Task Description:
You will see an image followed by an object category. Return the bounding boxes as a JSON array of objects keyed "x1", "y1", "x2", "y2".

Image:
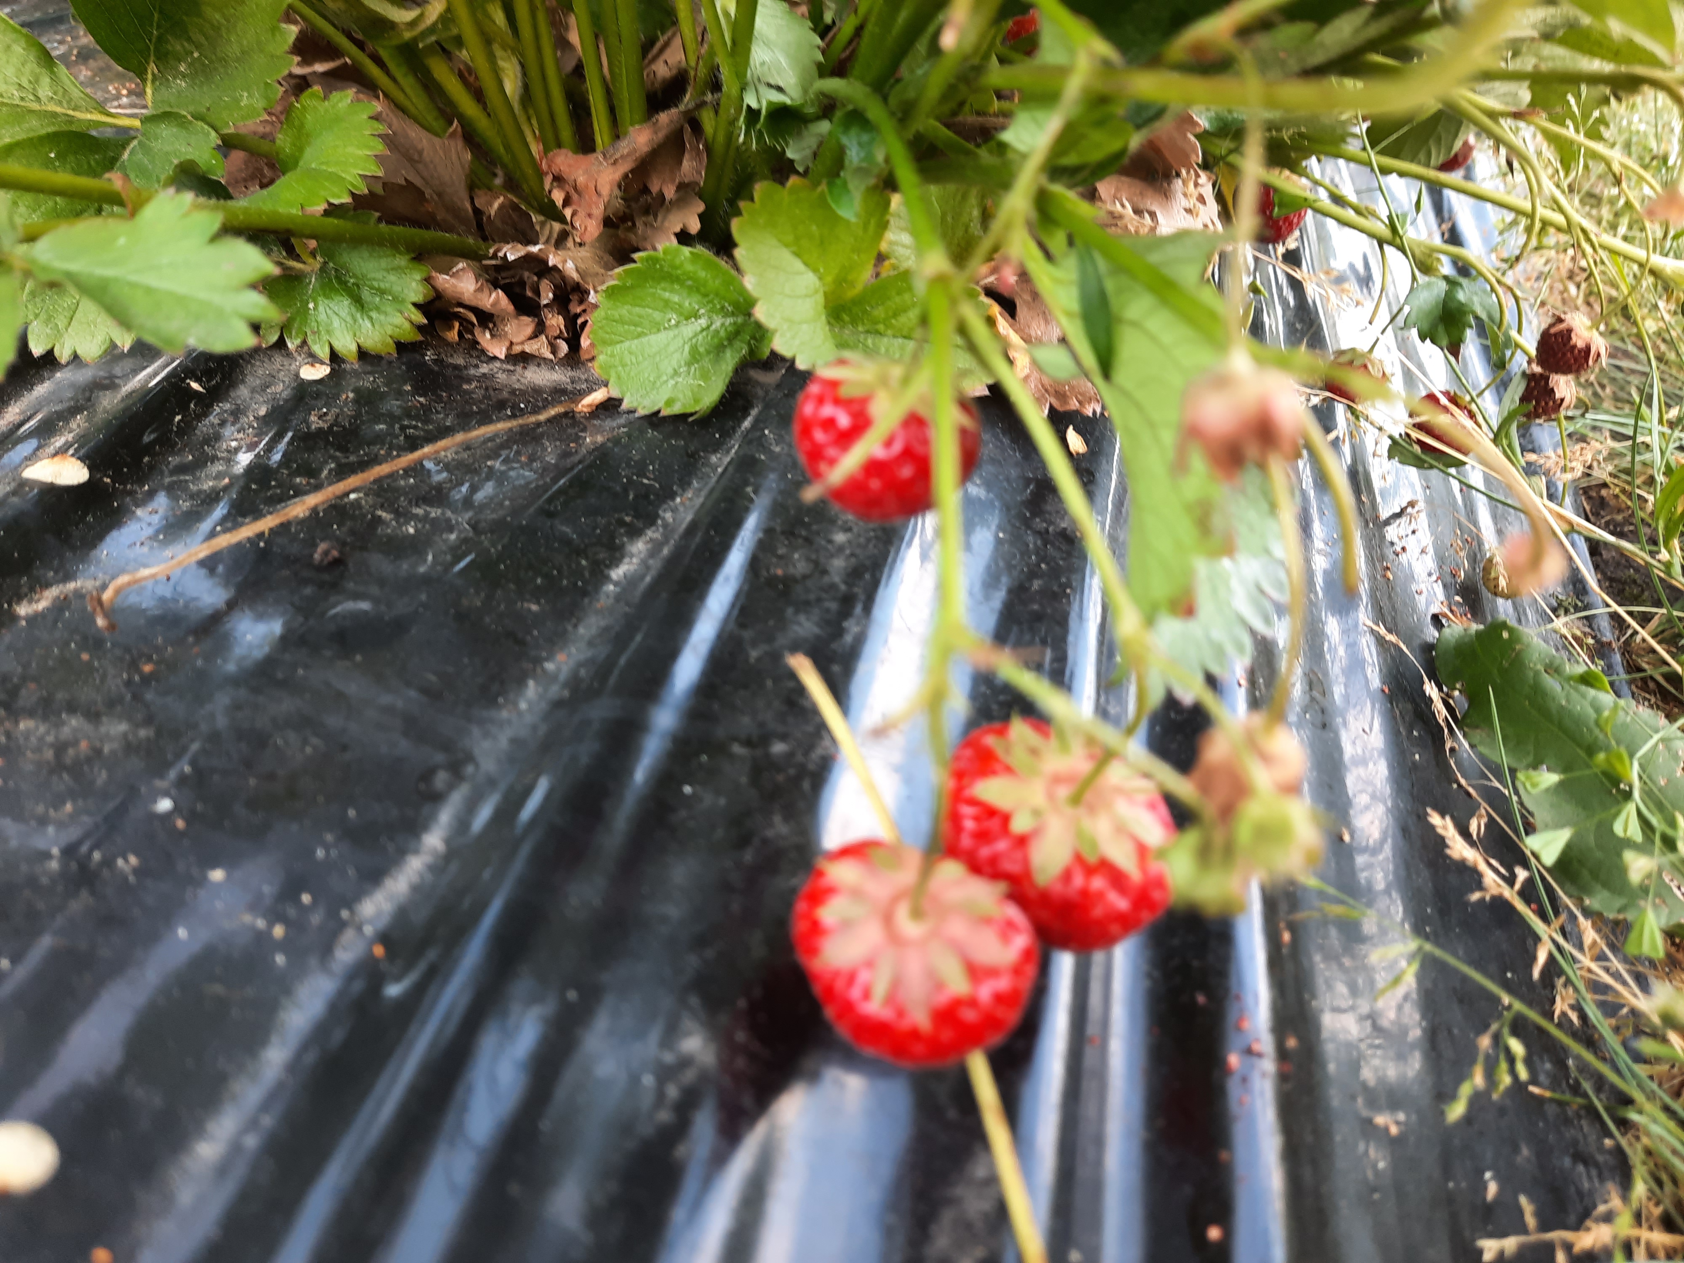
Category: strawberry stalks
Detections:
[
  {"x1": 1034, "y1": 500, "x2": 1159, "y2": 819},
  {"x1": 878, "y1": 638, "x2": 965, "y2": 948}
]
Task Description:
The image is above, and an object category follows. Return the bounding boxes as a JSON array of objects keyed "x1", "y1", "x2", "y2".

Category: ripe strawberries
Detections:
[
  {"x1": 957, "y1": 737, "x2": 1179, "y2": 908},
  {"x1": 802, "y1": 849, "x2": 1024, "y2": 1074},
  {"x1": 792, "y1": 358, "x2": 974, "y2": 500}
]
